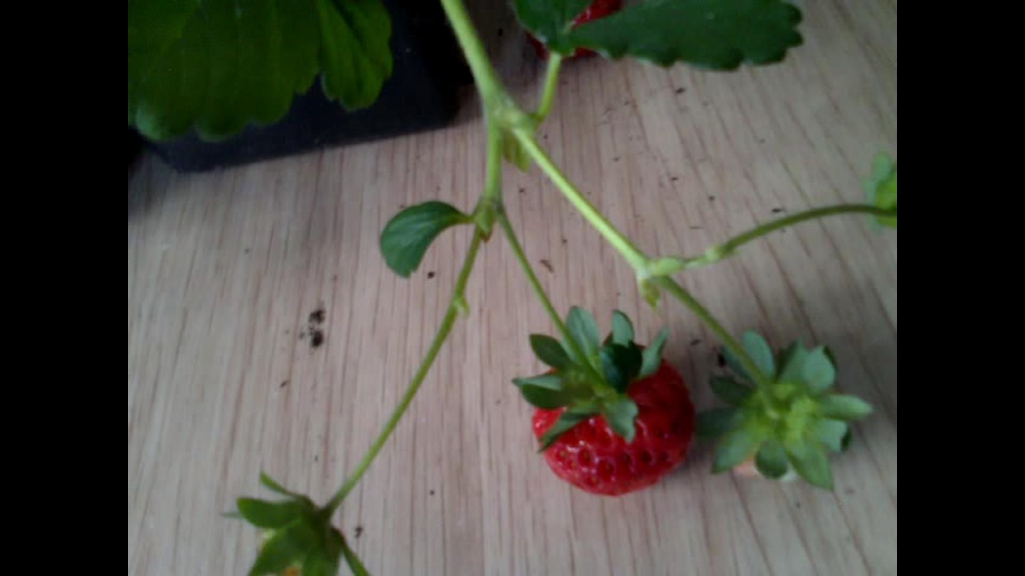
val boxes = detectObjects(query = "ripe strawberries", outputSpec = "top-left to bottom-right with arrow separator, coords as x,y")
521,1 -> 613,66
533,334 -> 679,501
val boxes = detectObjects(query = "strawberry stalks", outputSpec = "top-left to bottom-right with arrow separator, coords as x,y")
519,238 -> 589,393
777,190 -> 893,233
538,22 -> 571,101
723,326 -> 796,423
327,416 -> 419,525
